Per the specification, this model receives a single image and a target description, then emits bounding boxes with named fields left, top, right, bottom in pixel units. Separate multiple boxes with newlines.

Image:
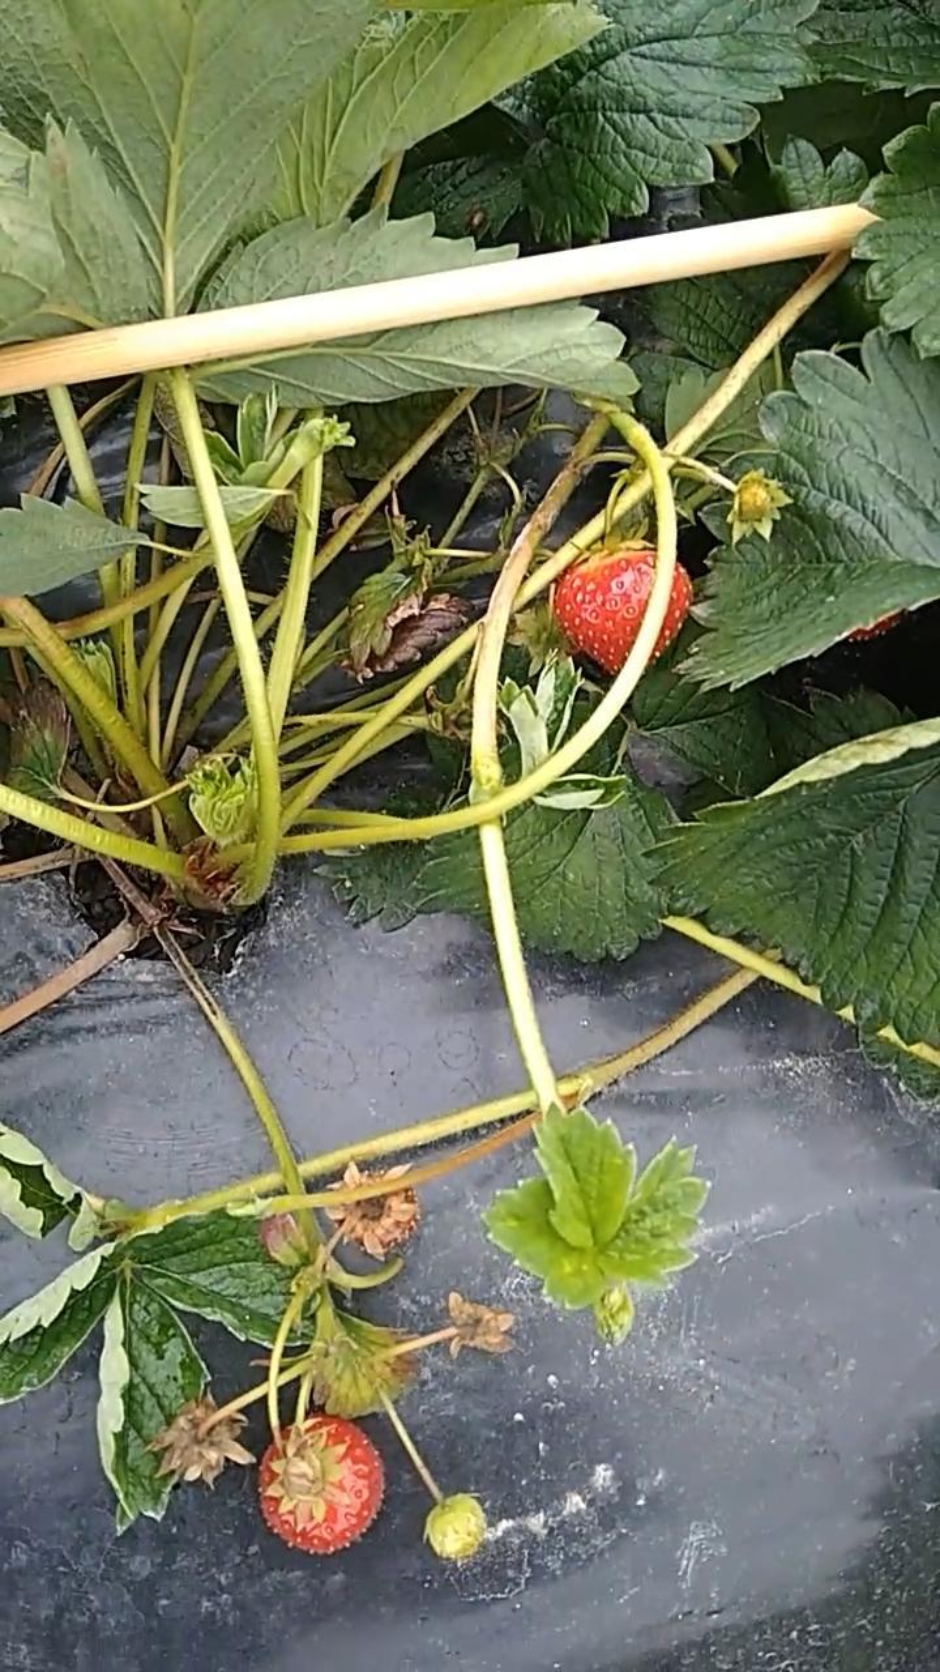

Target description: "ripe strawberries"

left=252, top=1418, right=385, bottom=1555
left=556, top=543, right=696, bottom=687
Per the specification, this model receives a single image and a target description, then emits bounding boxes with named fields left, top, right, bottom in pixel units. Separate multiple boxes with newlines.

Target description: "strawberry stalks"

left=581, top=464, right=649, bottom=569
left=407, top=1416, right=460, bottom=1519
left=253, top=1293, right=314, bottom=1468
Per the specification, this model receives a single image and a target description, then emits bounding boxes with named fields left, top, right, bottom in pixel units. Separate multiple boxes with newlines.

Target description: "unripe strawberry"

left=420, top=1494, right=495, bottom=1565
